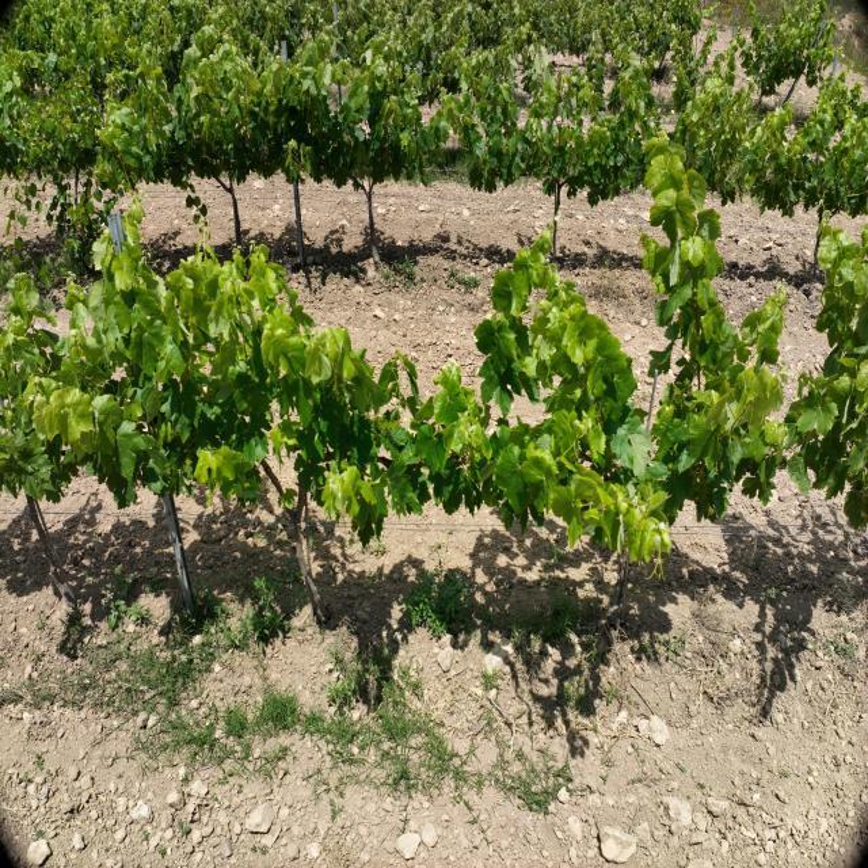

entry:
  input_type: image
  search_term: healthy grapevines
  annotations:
[129,237,473,660]
[470,224,786,673]
[0,225,125,627]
